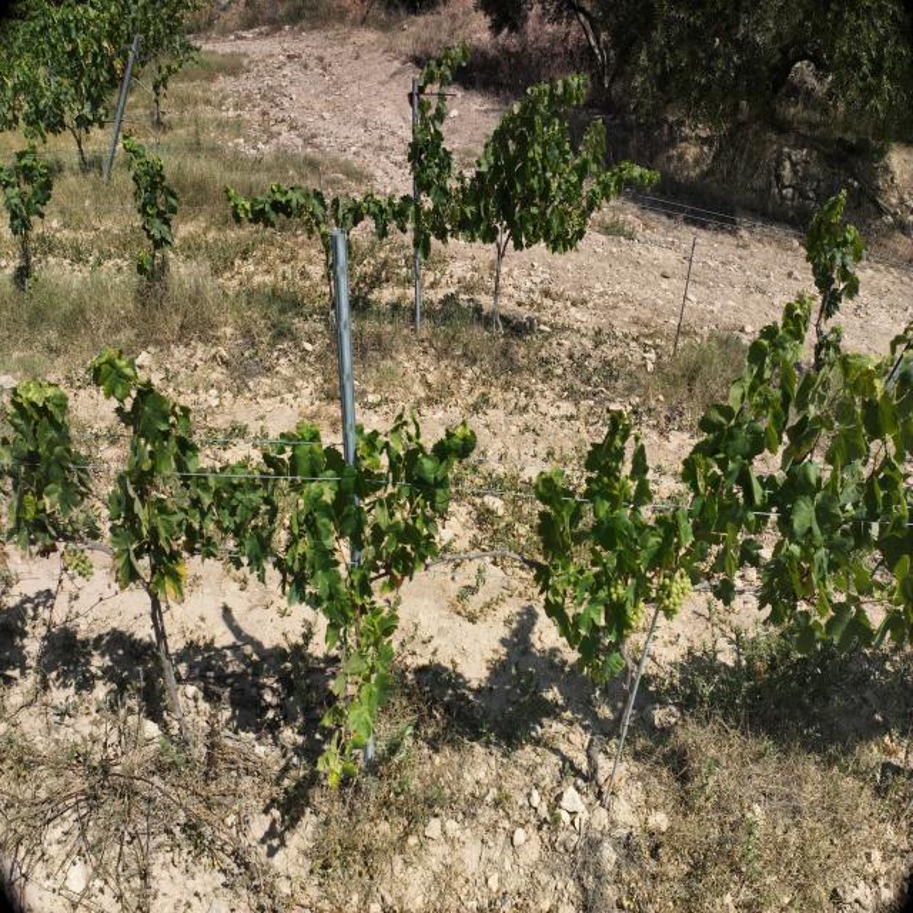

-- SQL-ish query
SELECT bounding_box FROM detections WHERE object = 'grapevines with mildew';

[0,341,459,806]
[514,325,907,772]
